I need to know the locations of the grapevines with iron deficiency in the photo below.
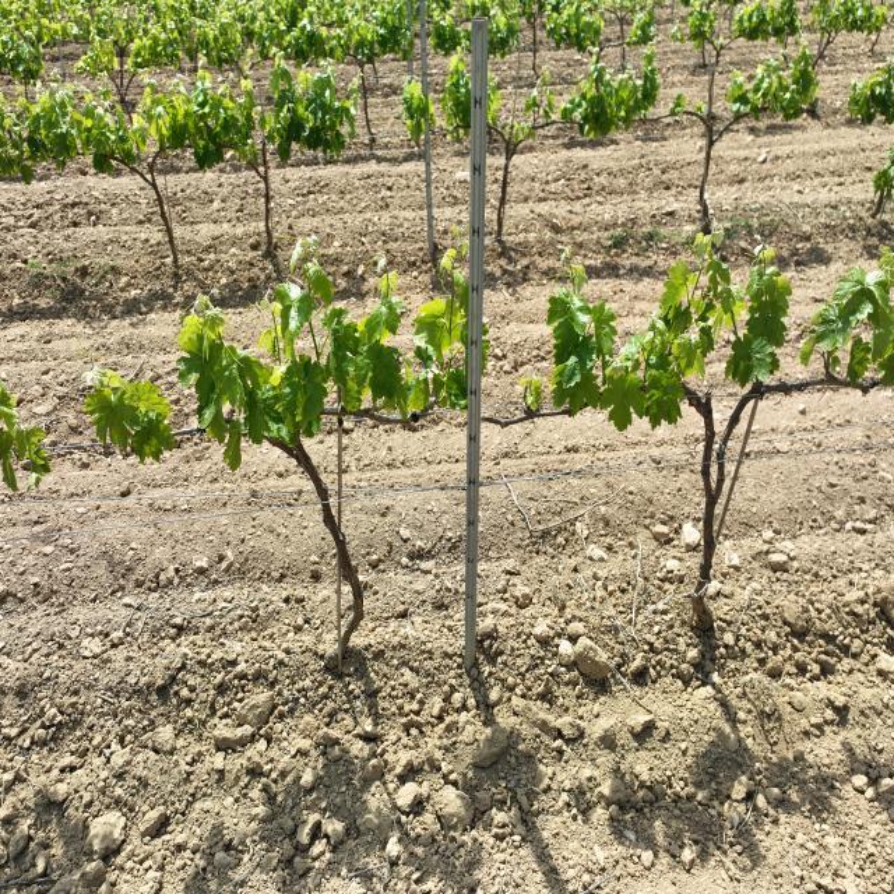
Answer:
[517,242,894,661]
[78,237,496,705]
